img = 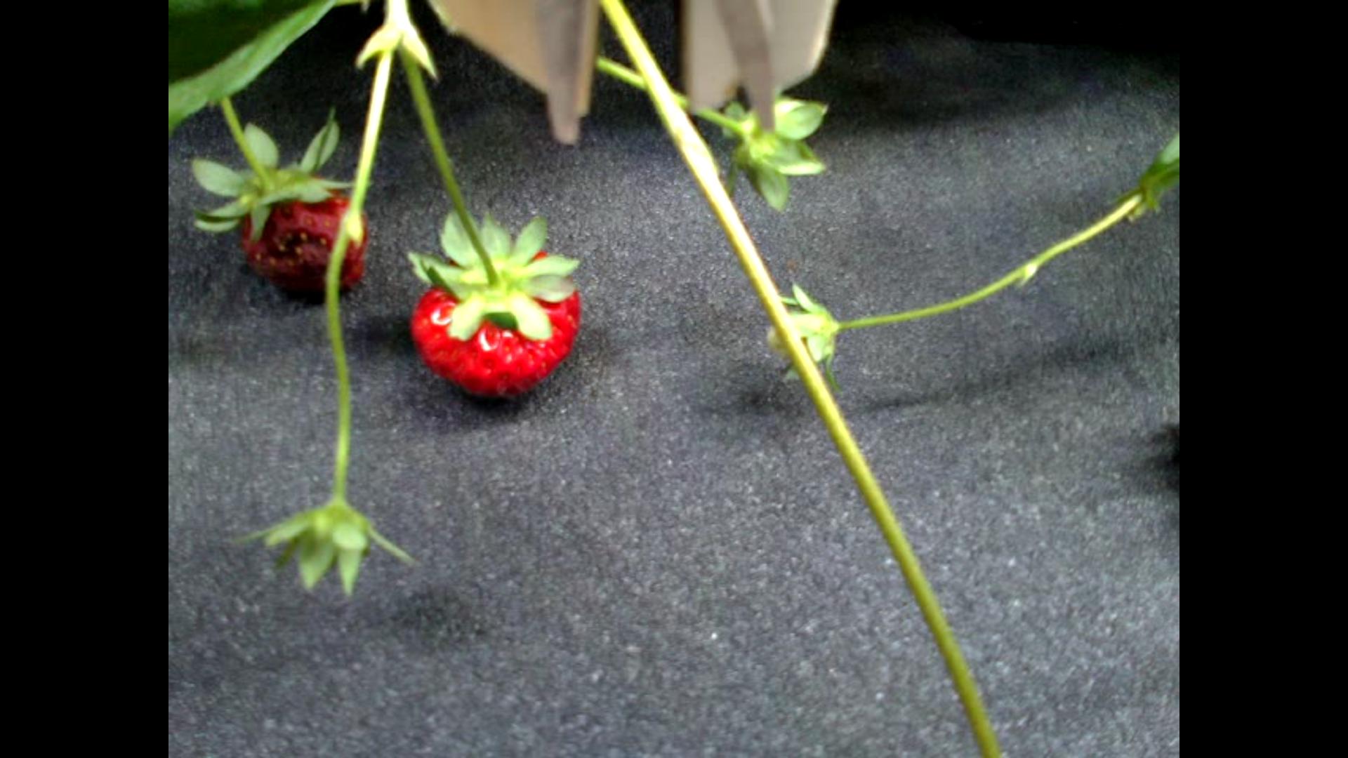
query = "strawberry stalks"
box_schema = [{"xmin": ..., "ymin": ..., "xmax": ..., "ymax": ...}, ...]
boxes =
[
  {"xmin": 221, "ymin": 102, "xmax": 328, "ymax": 241},
  {"xmin": 815, "ymin": 301, "xmax": 917, "ymax": 343},
  {"xmin": 318, "ymin": 389, "xmax": 351, "ymax": 530},
  {"xmin": 413, "ymin": 64, "xmax": 530, "ymax": 314},
  {"xmin": 666, "ymin": 73, "xmax": 767, "ymax": 145}
]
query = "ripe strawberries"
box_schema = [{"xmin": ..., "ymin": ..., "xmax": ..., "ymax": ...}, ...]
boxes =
[
  {"xmin": 218, "ymin": 128, "xmax": 382, "ymax": 304},
  {"xmin": 411, "ymin": 221, "xmax": 571, "ymax": 384}
]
